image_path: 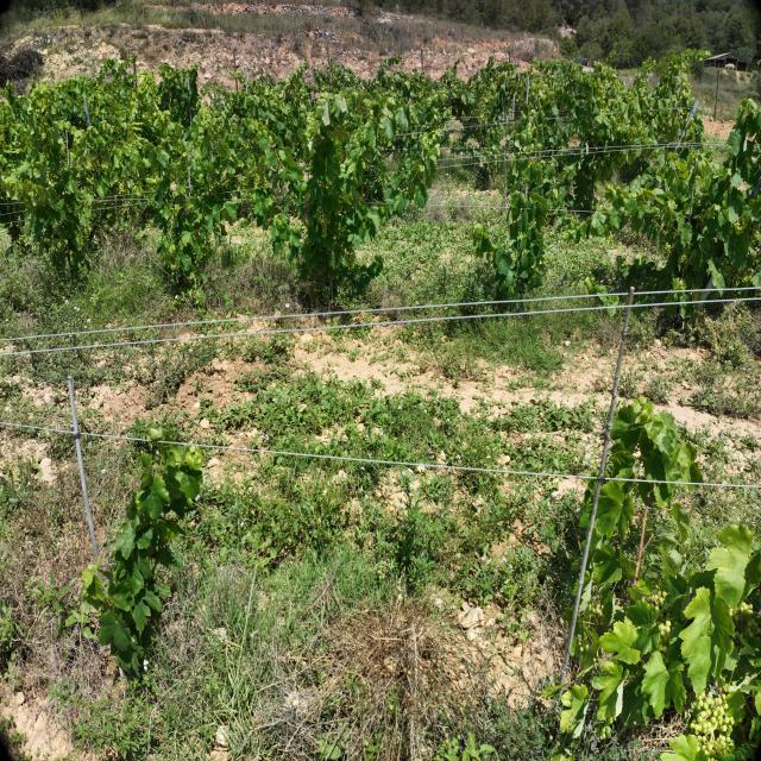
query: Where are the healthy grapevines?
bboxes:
[64,404,229,719]
[554,388,756,738]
